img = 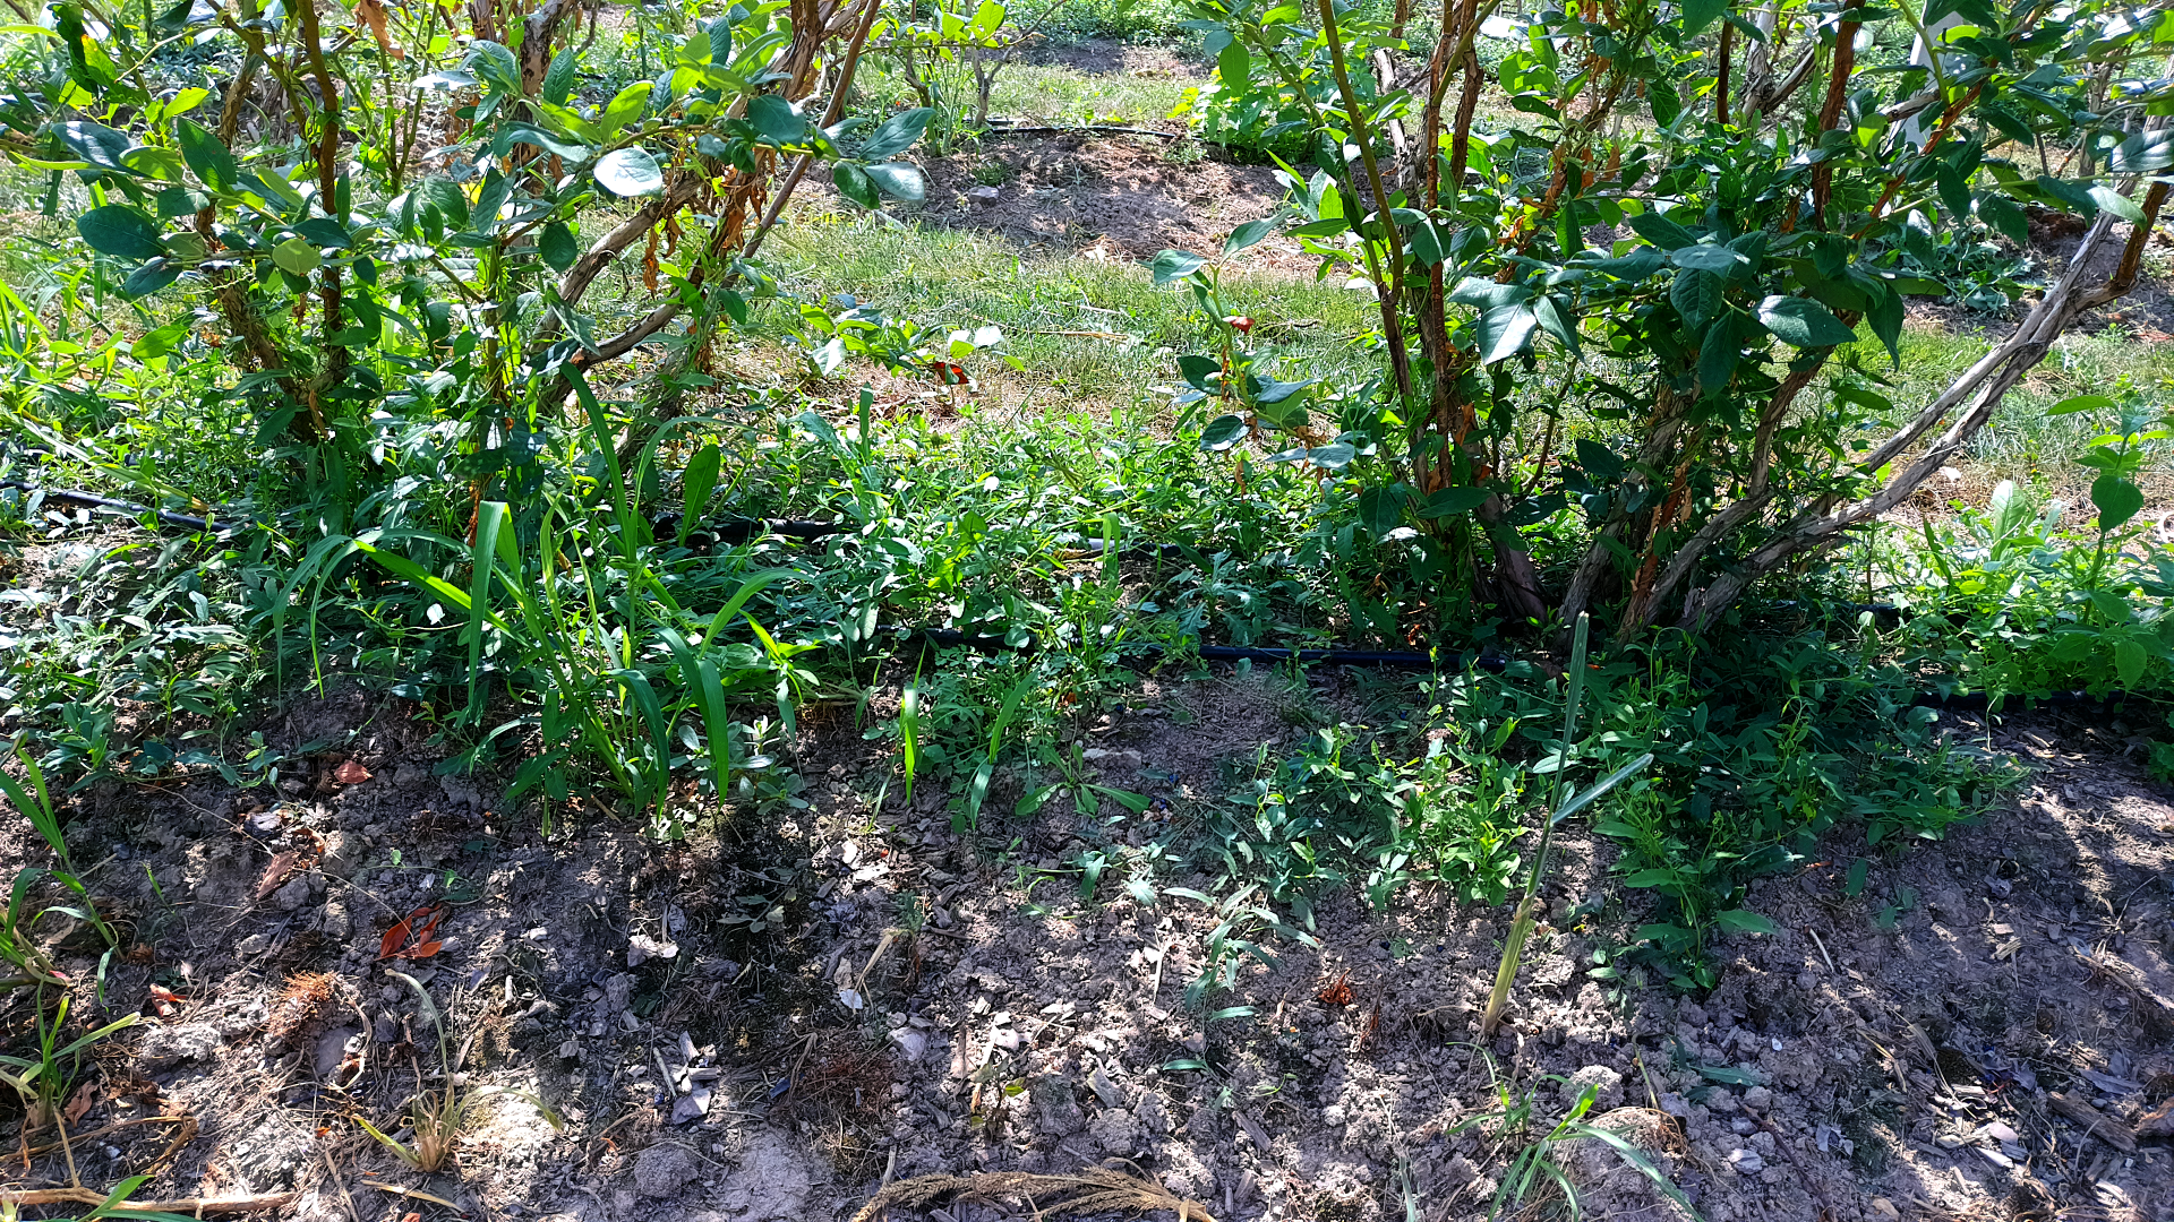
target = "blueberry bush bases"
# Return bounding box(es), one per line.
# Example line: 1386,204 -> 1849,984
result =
1310,336 -> 1975,784
194,296 -> 758,713
850,56 -> 1004,155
